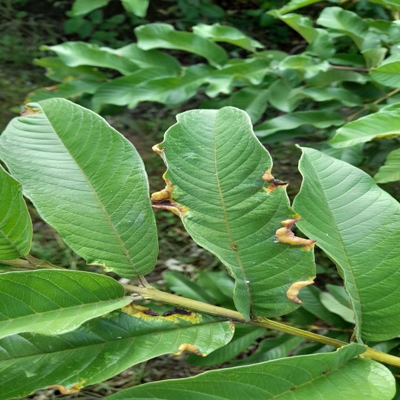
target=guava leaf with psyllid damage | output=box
[151,103,327,325]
